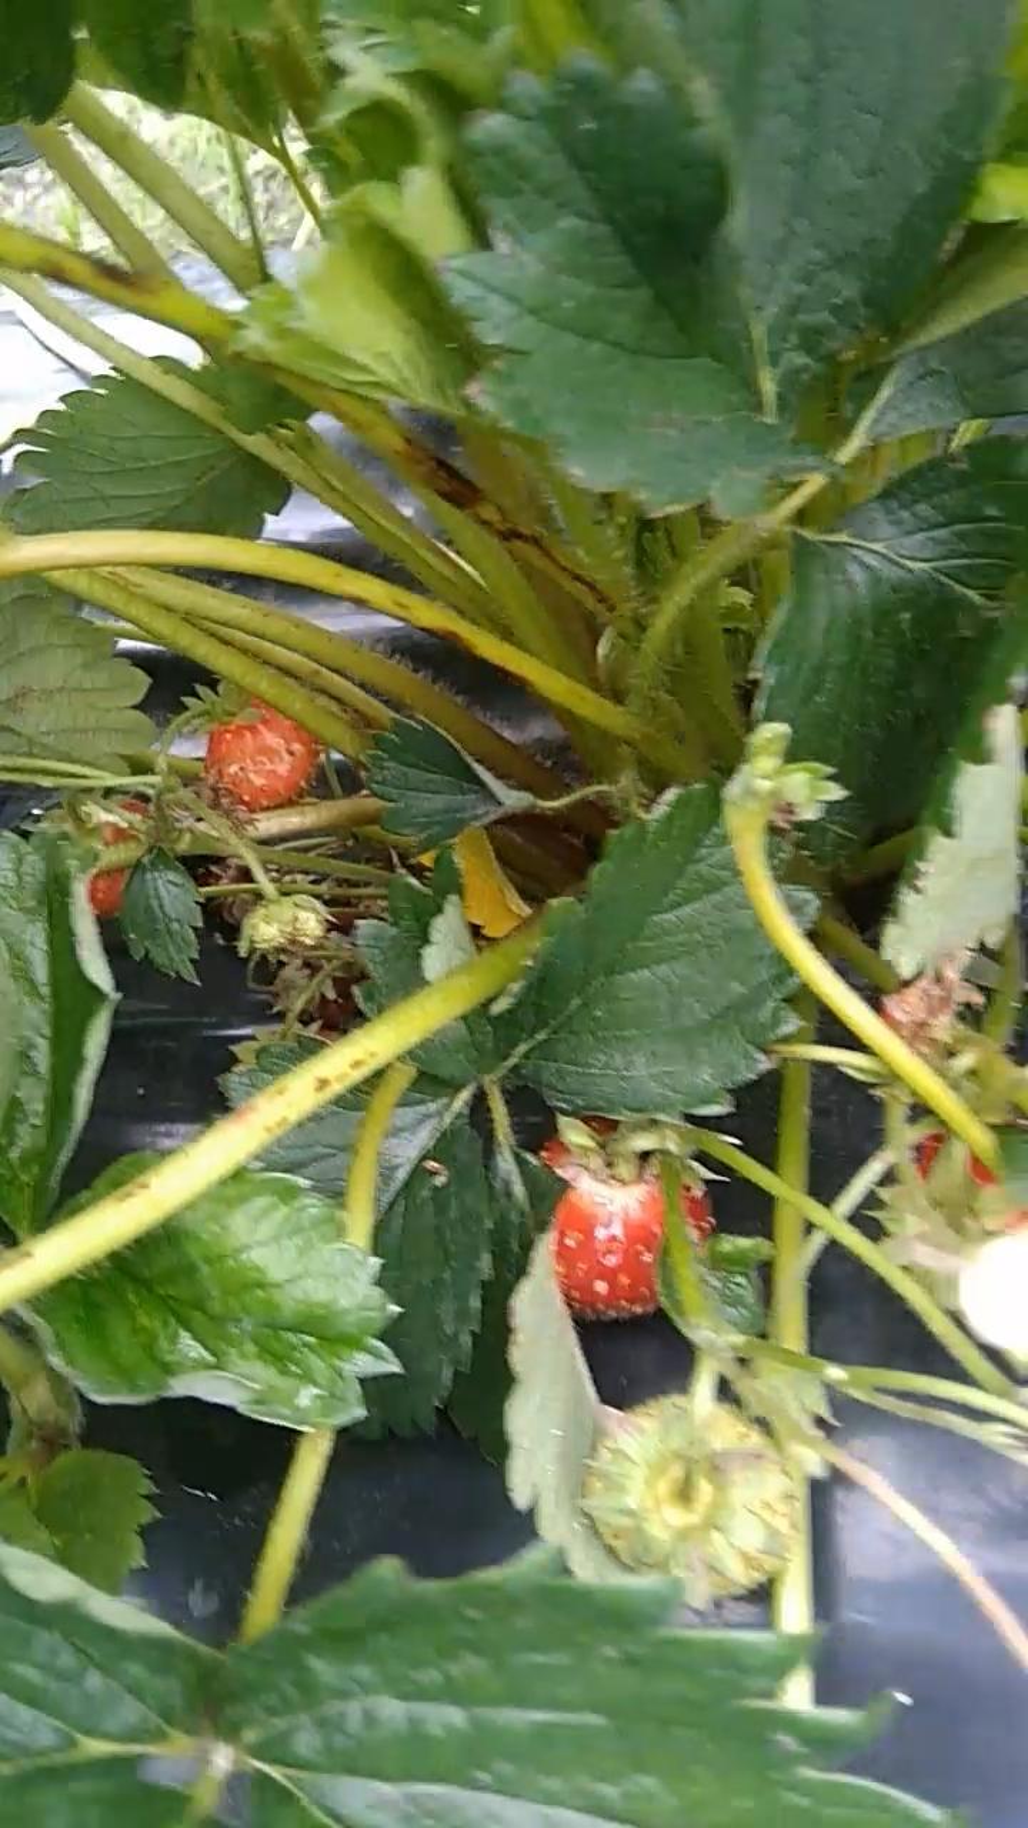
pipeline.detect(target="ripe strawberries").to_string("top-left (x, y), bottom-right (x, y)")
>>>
top-left (535, 1125), bottom-right (732, 1325)
top-left (210, 708), bottom-right (321, 815)
top-left (28, 780), bottom-right (163, 911)
top-left (897, 1115), bottom-right (1028, 1245)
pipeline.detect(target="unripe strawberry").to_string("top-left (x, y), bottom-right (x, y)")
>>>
top-left (584, 1392), bottom-right (804, 1606)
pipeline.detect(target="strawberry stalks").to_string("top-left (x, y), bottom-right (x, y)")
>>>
top-left (589, 1123), bottom-right (746, 1202)
top-left (659, 1421), bottom-right (885, 1505)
